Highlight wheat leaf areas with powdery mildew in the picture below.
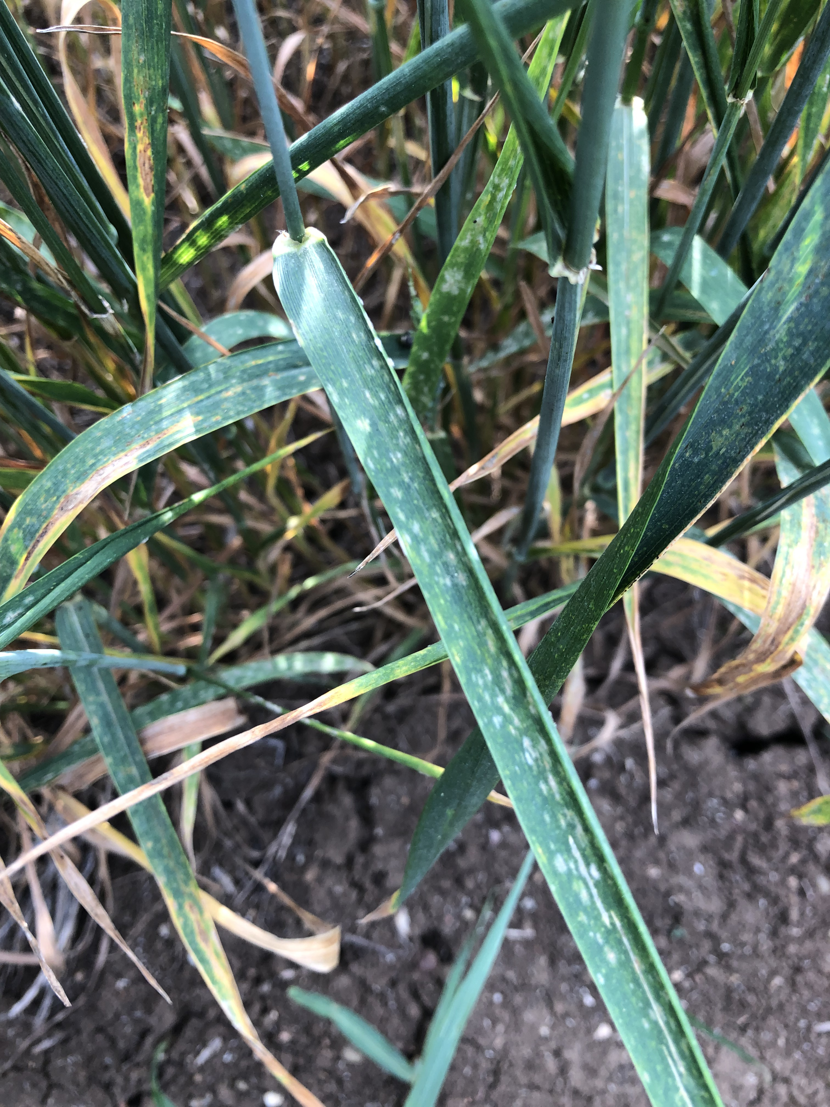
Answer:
[386,165,531,449]
[0,585,38,631]
[0,350,323,596]
[64,681,148,789]
[282,254,715,1107]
